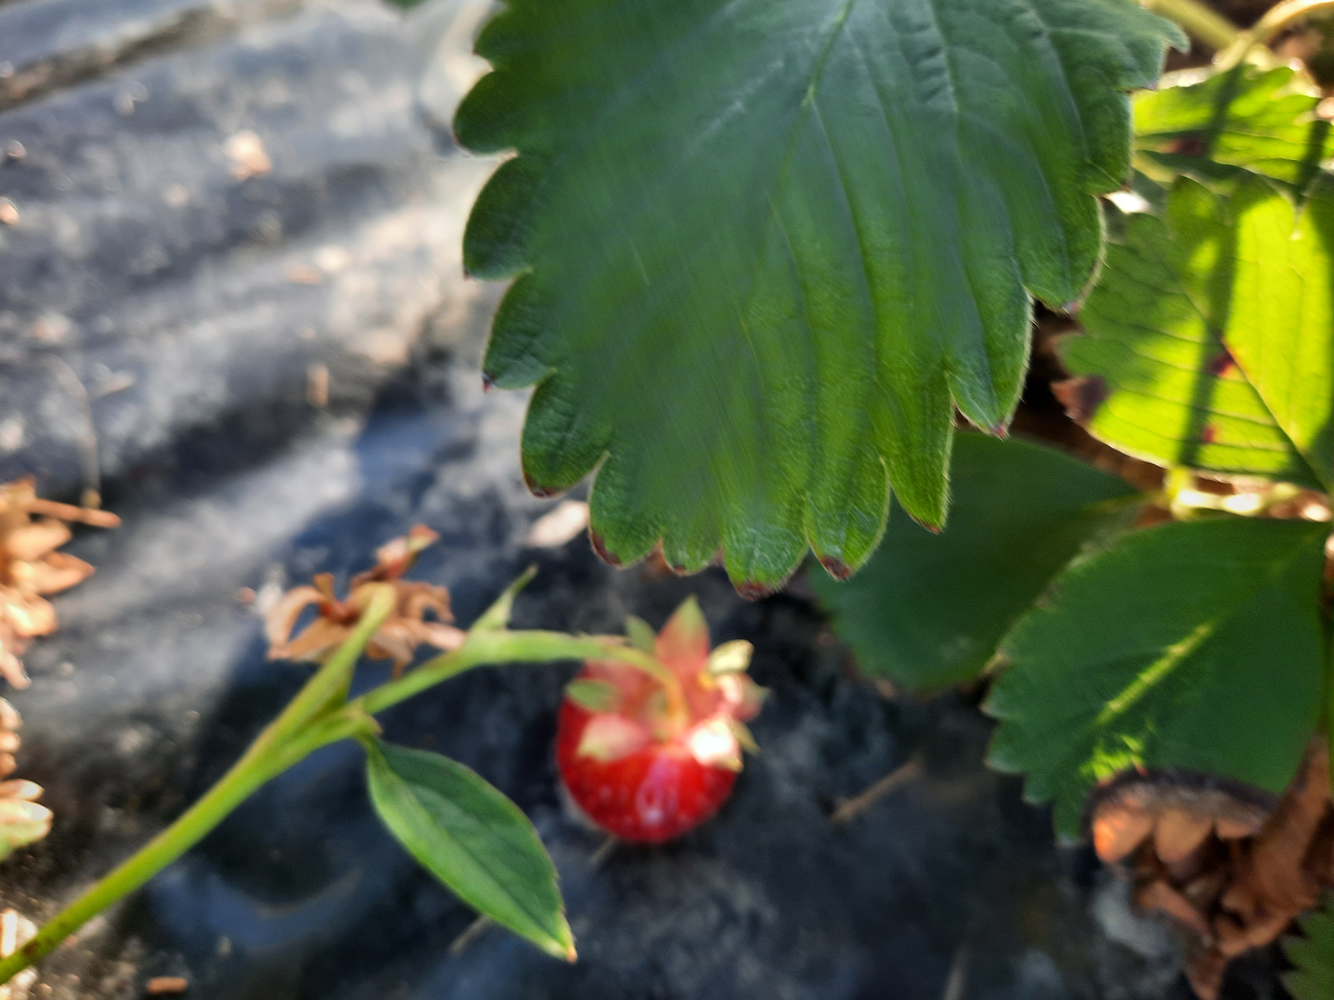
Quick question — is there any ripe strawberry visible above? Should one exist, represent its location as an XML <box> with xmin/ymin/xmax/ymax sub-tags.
<box><xmin>556</xmin><ymin>660</ymin><xmax>746</xmax><ymax>849</ymax></box>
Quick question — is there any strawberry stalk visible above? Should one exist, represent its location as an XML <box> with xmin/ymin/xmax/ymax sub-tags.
<box><xmin>472</xmin><ymin>615</ymin><xmax>698</xmax><ymax>737</ymax></box>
